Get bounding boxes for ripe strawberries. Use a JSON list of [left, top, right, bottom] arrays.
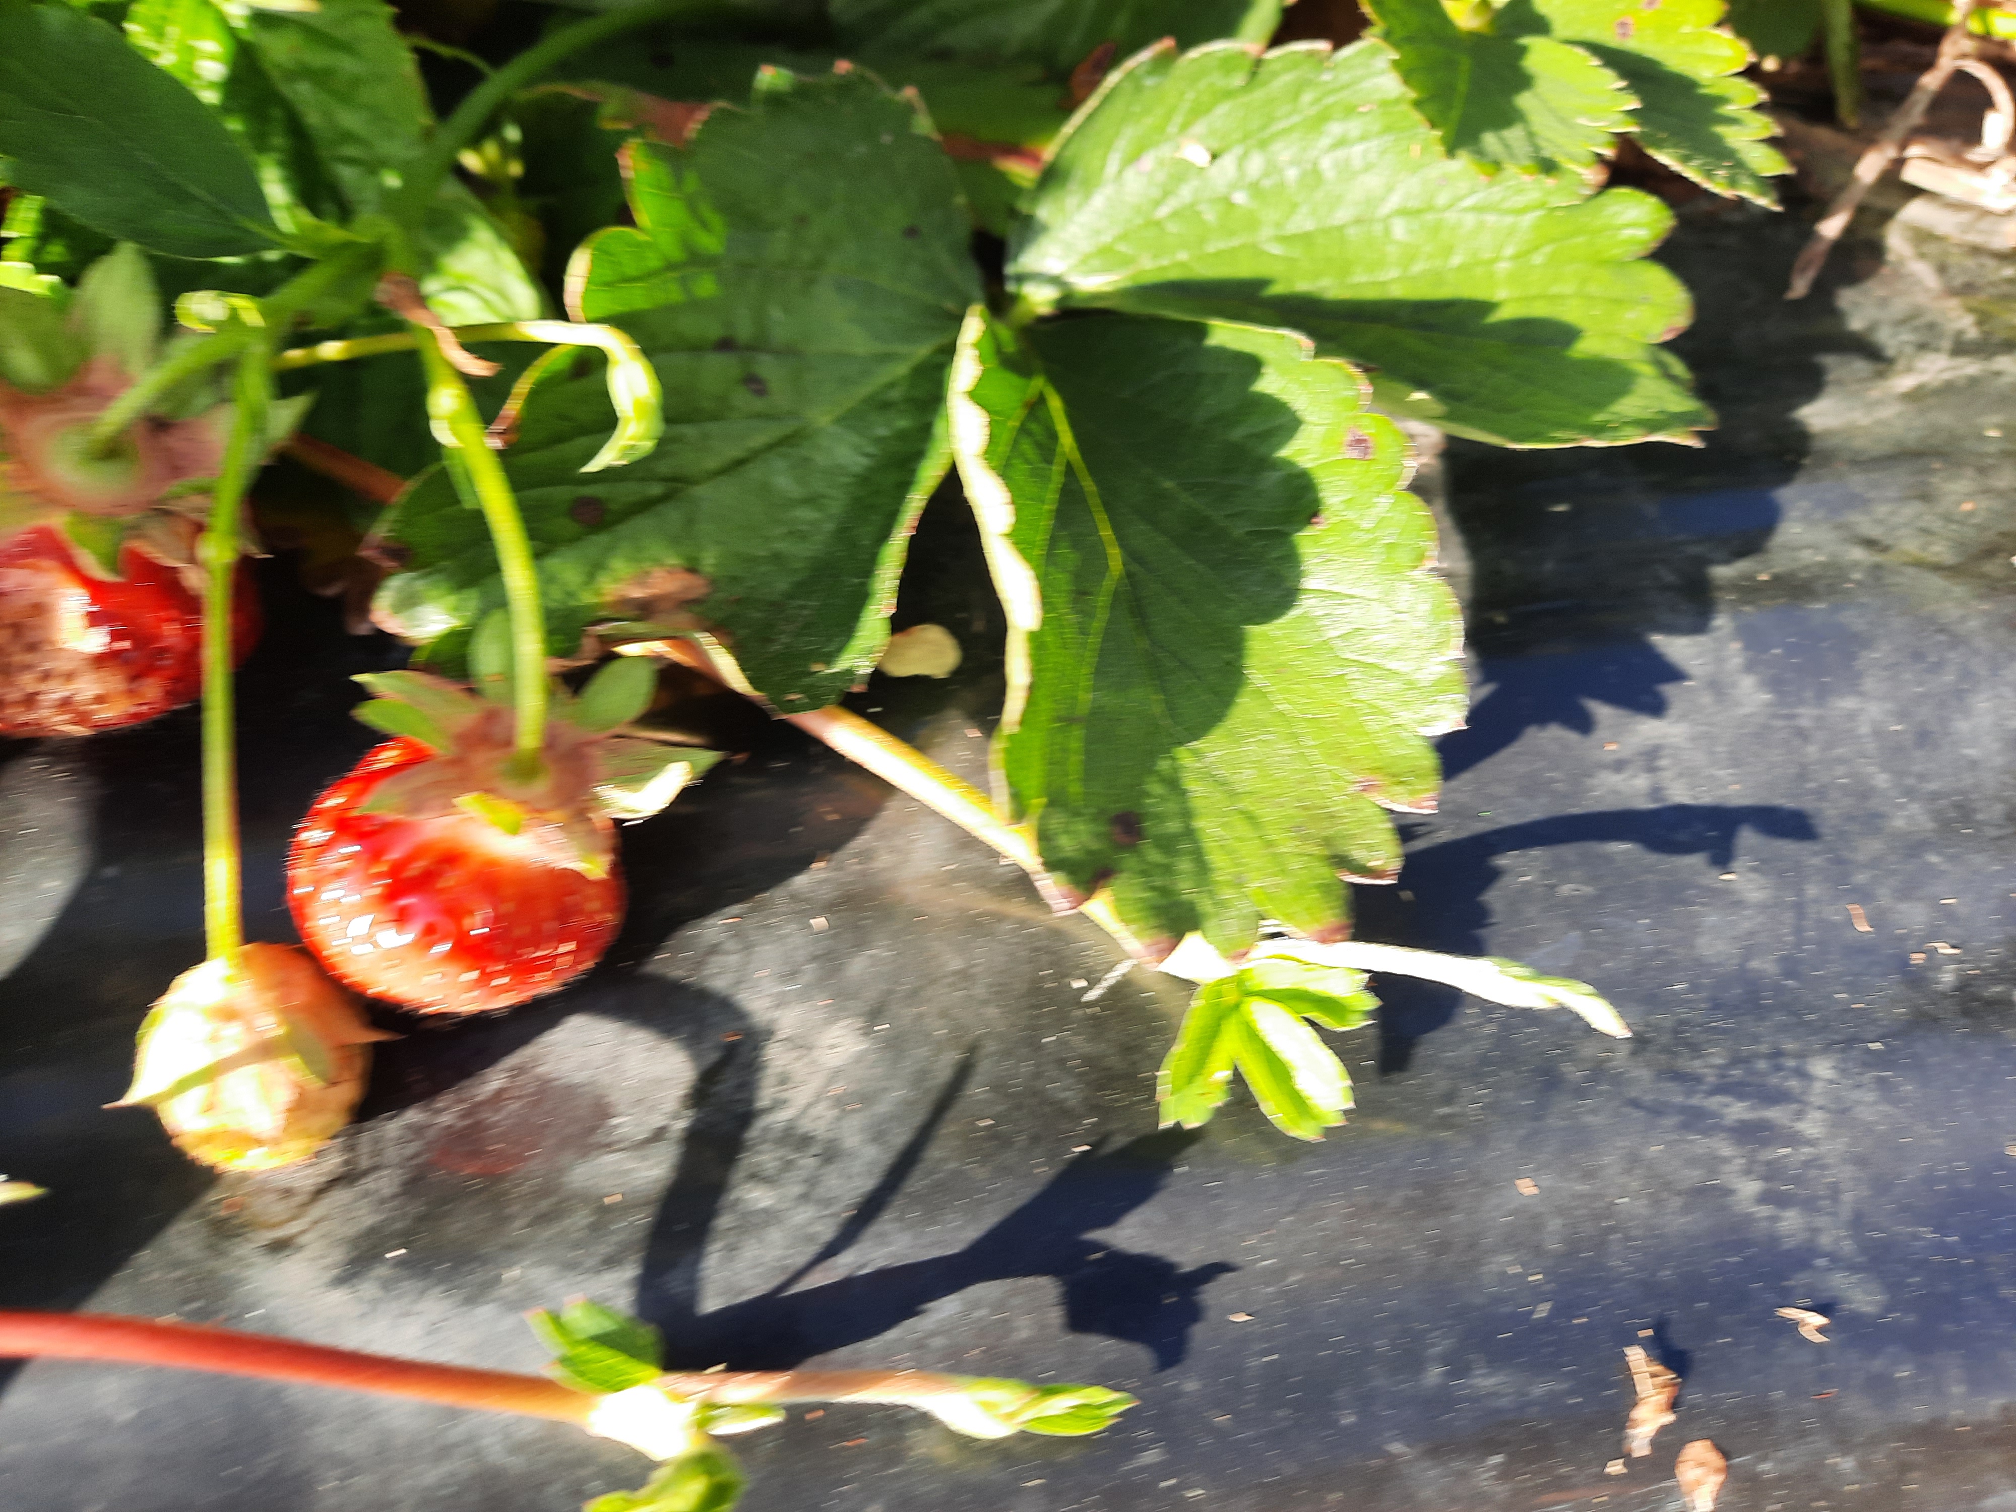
[[310, 736, 607, 1001], [0, 451, 198, 737]]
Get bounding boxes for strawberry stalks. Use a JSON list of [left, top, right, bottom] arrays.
[[50, 323, 276, 500], [432, 371, 560, 830], [198, 561, 258, 1003]]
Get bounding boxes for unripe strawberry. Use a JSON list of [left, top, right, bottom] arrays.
[[148, 981, 323, 1144]]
